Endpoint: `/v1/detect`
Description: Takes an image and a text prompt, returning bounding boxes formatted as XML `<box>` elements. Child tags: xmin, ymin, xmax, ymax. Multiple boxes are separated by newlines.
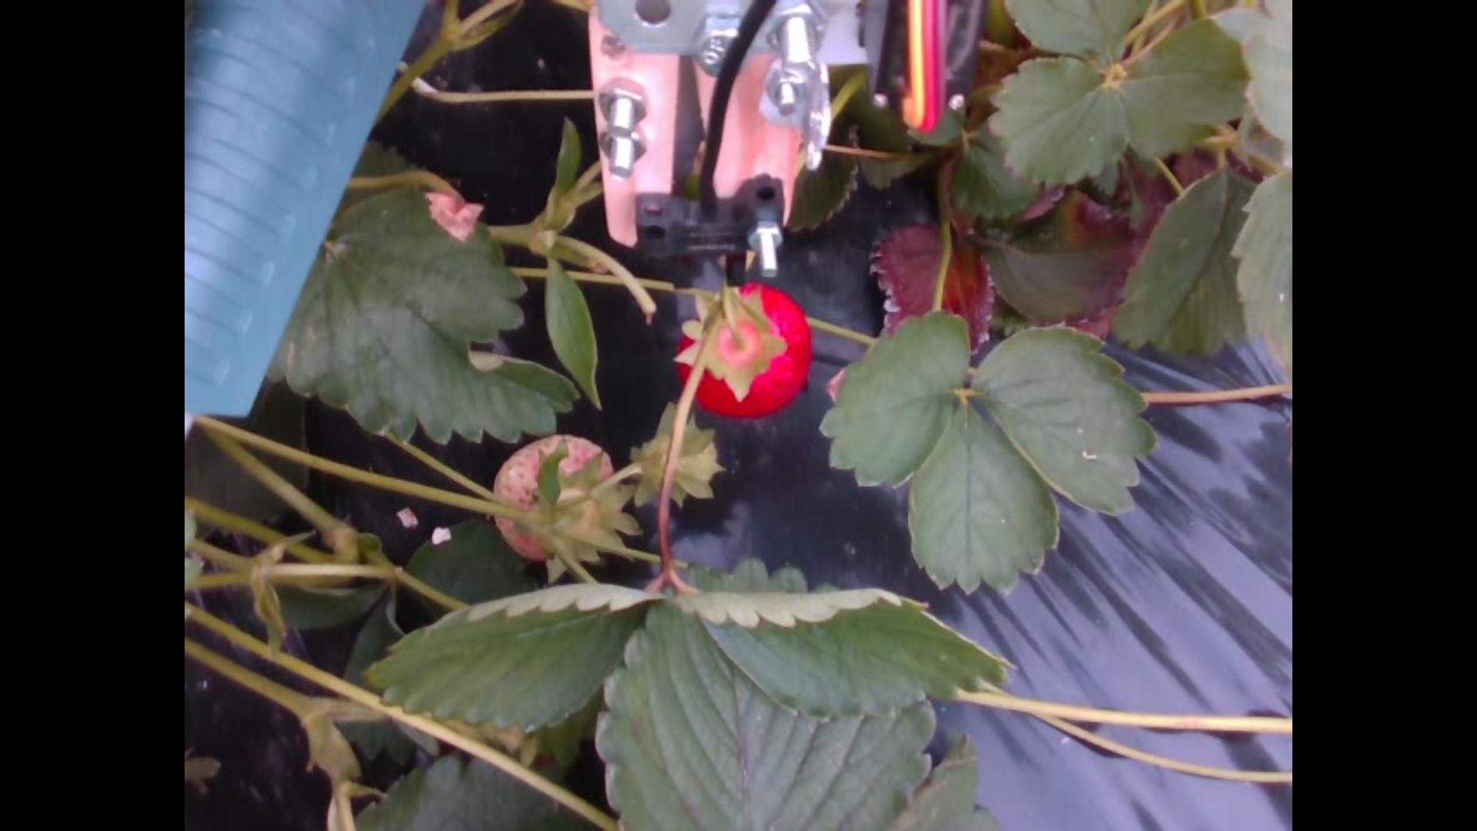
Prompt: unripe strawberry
<box><xmin>483</xmin><ymin>431</ymin><xmax>633</xmax><ymax>569</ymax></box>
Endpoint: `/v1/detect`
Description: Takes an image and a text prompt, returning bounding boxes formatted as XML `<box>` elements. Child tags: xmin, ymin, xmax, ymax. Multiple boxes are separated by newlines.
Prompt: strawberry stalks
<box><xmin>552</xmin><ymin>469</ymin><xmax>642</xmax><ymax>518</ymax></box>
<box><xmin>708</xmin><ymin>264</ymin><xmax>756</xmax><ymax>364</ymax></box>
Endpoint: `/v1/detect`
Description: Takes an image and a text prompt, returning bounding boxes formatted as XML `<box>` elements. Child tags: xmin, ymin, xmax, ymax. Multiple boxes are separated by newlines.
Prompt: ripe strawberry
<box><xmin>658</xmin><ymin>291</ymin><xmax>800</xmax><ymax>418</ymax></box>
